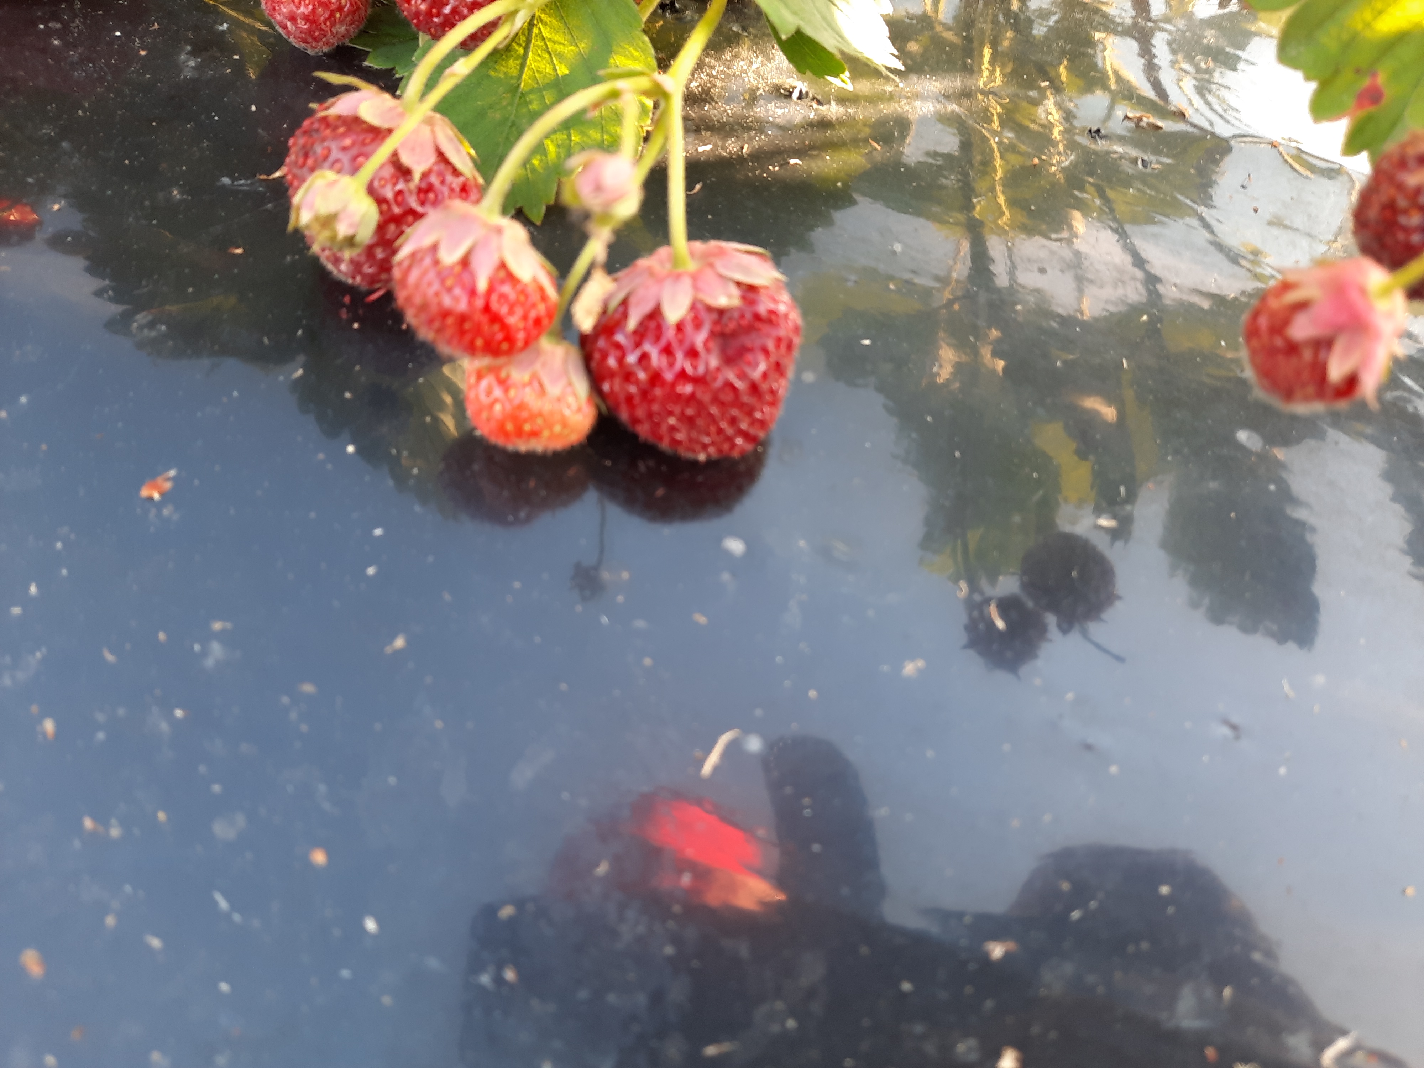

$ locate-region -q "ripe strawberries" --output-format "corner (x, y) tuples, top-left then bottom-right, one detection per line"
(295, 108), (469, 291)
(400, 222), (553, 349)
(607, 236), (799, 454)
(1253, 247), (1393, 416)
(480, 320), (582, 454)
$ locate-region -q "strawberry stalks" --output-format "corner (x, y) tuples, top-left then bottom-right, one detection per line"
(529, 229), (608, 367)
(656, 16), (705, 307)
(1348, 216), (1424, 316)
(452, 88), (576, 258)
(373, 0), (527, 139)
